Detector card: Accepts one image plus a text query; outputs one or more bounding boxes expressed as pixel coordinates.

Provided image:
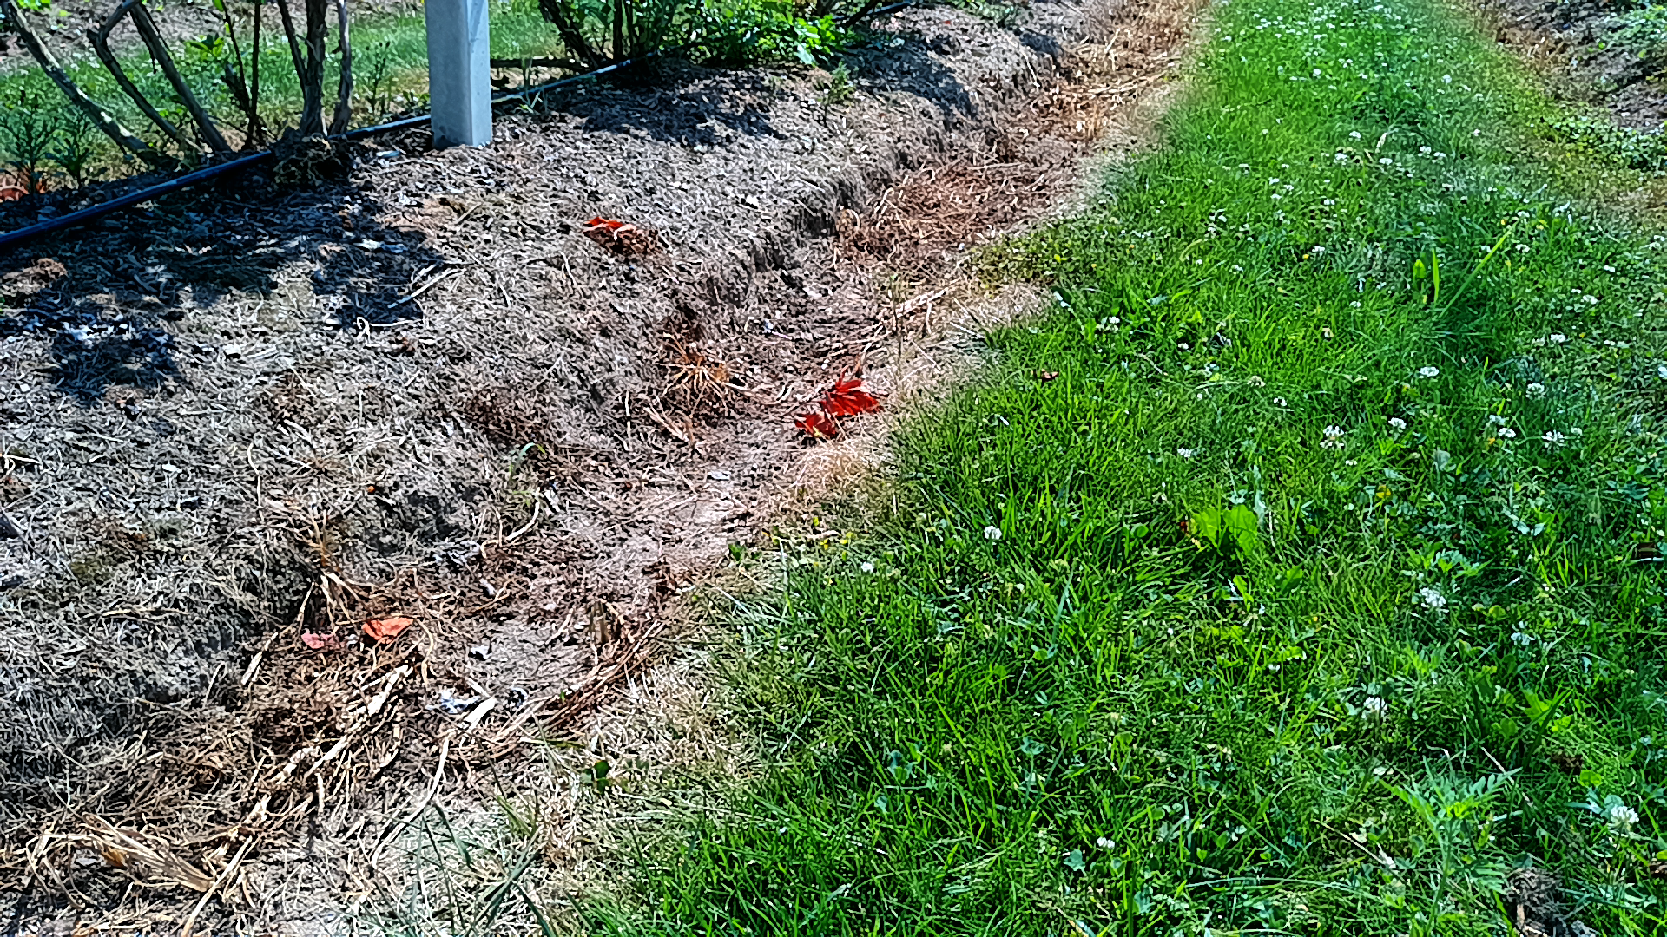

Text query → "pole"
[419,2,501,160]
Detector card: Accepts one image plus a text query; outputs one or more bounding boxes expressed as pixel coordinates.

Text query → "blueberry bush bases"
[524,2,692,92]
[7,8,381,211]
